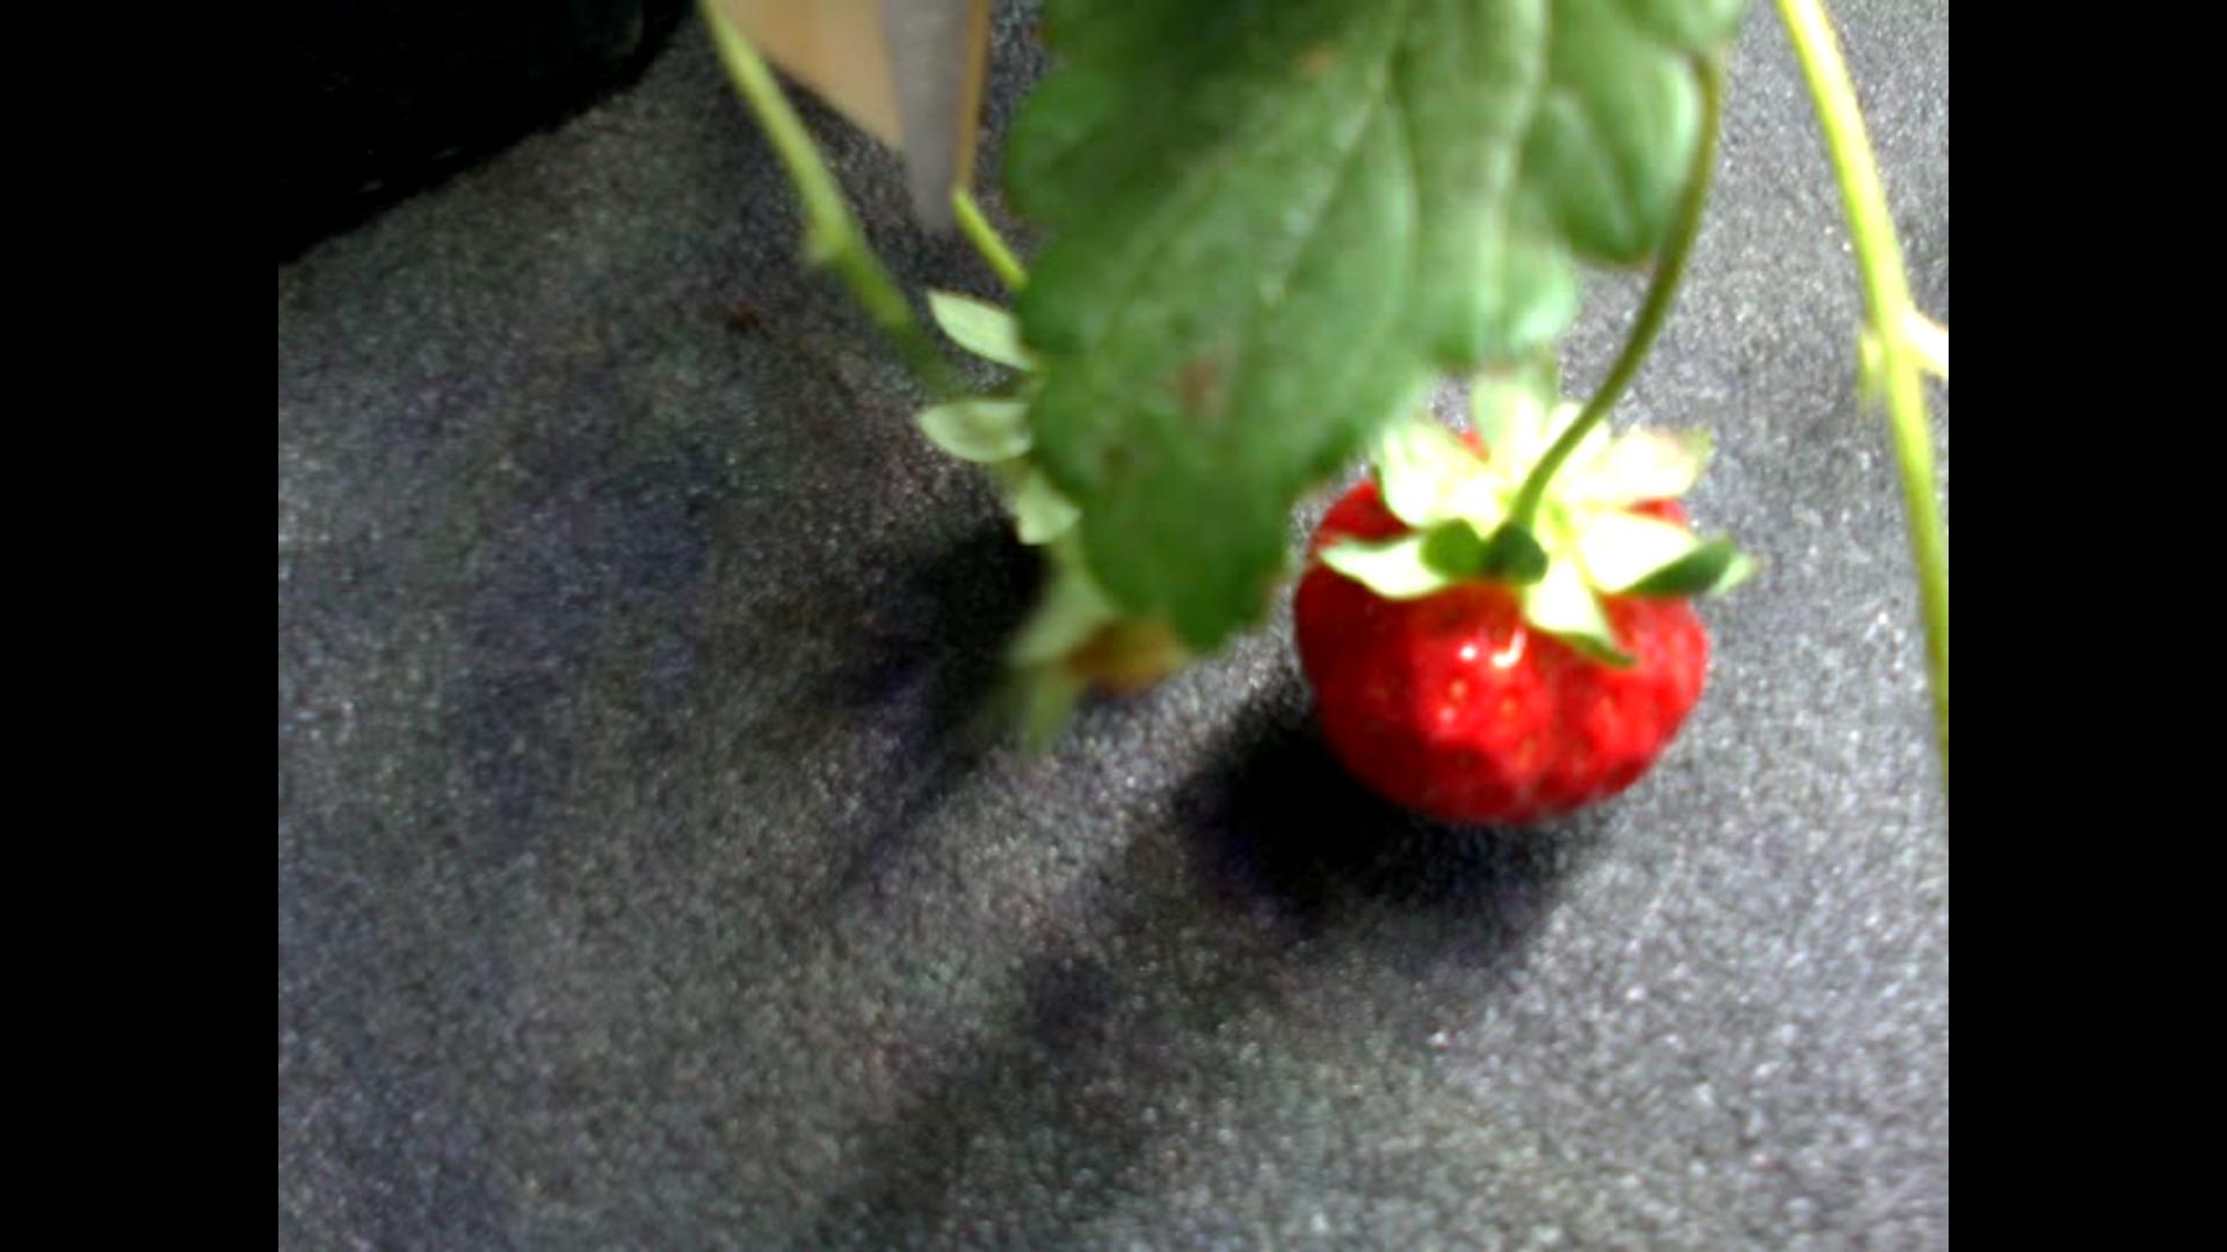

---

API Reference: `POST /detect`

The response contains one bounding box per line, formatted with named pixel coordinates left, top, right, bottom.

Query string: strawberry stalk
left=1413, top=35, right=1755, bottom=654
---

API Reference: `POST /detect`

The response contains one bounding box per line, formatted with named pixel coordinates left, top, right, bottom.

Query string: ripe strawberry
left=1233, top=387, right=1757, bottom=873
